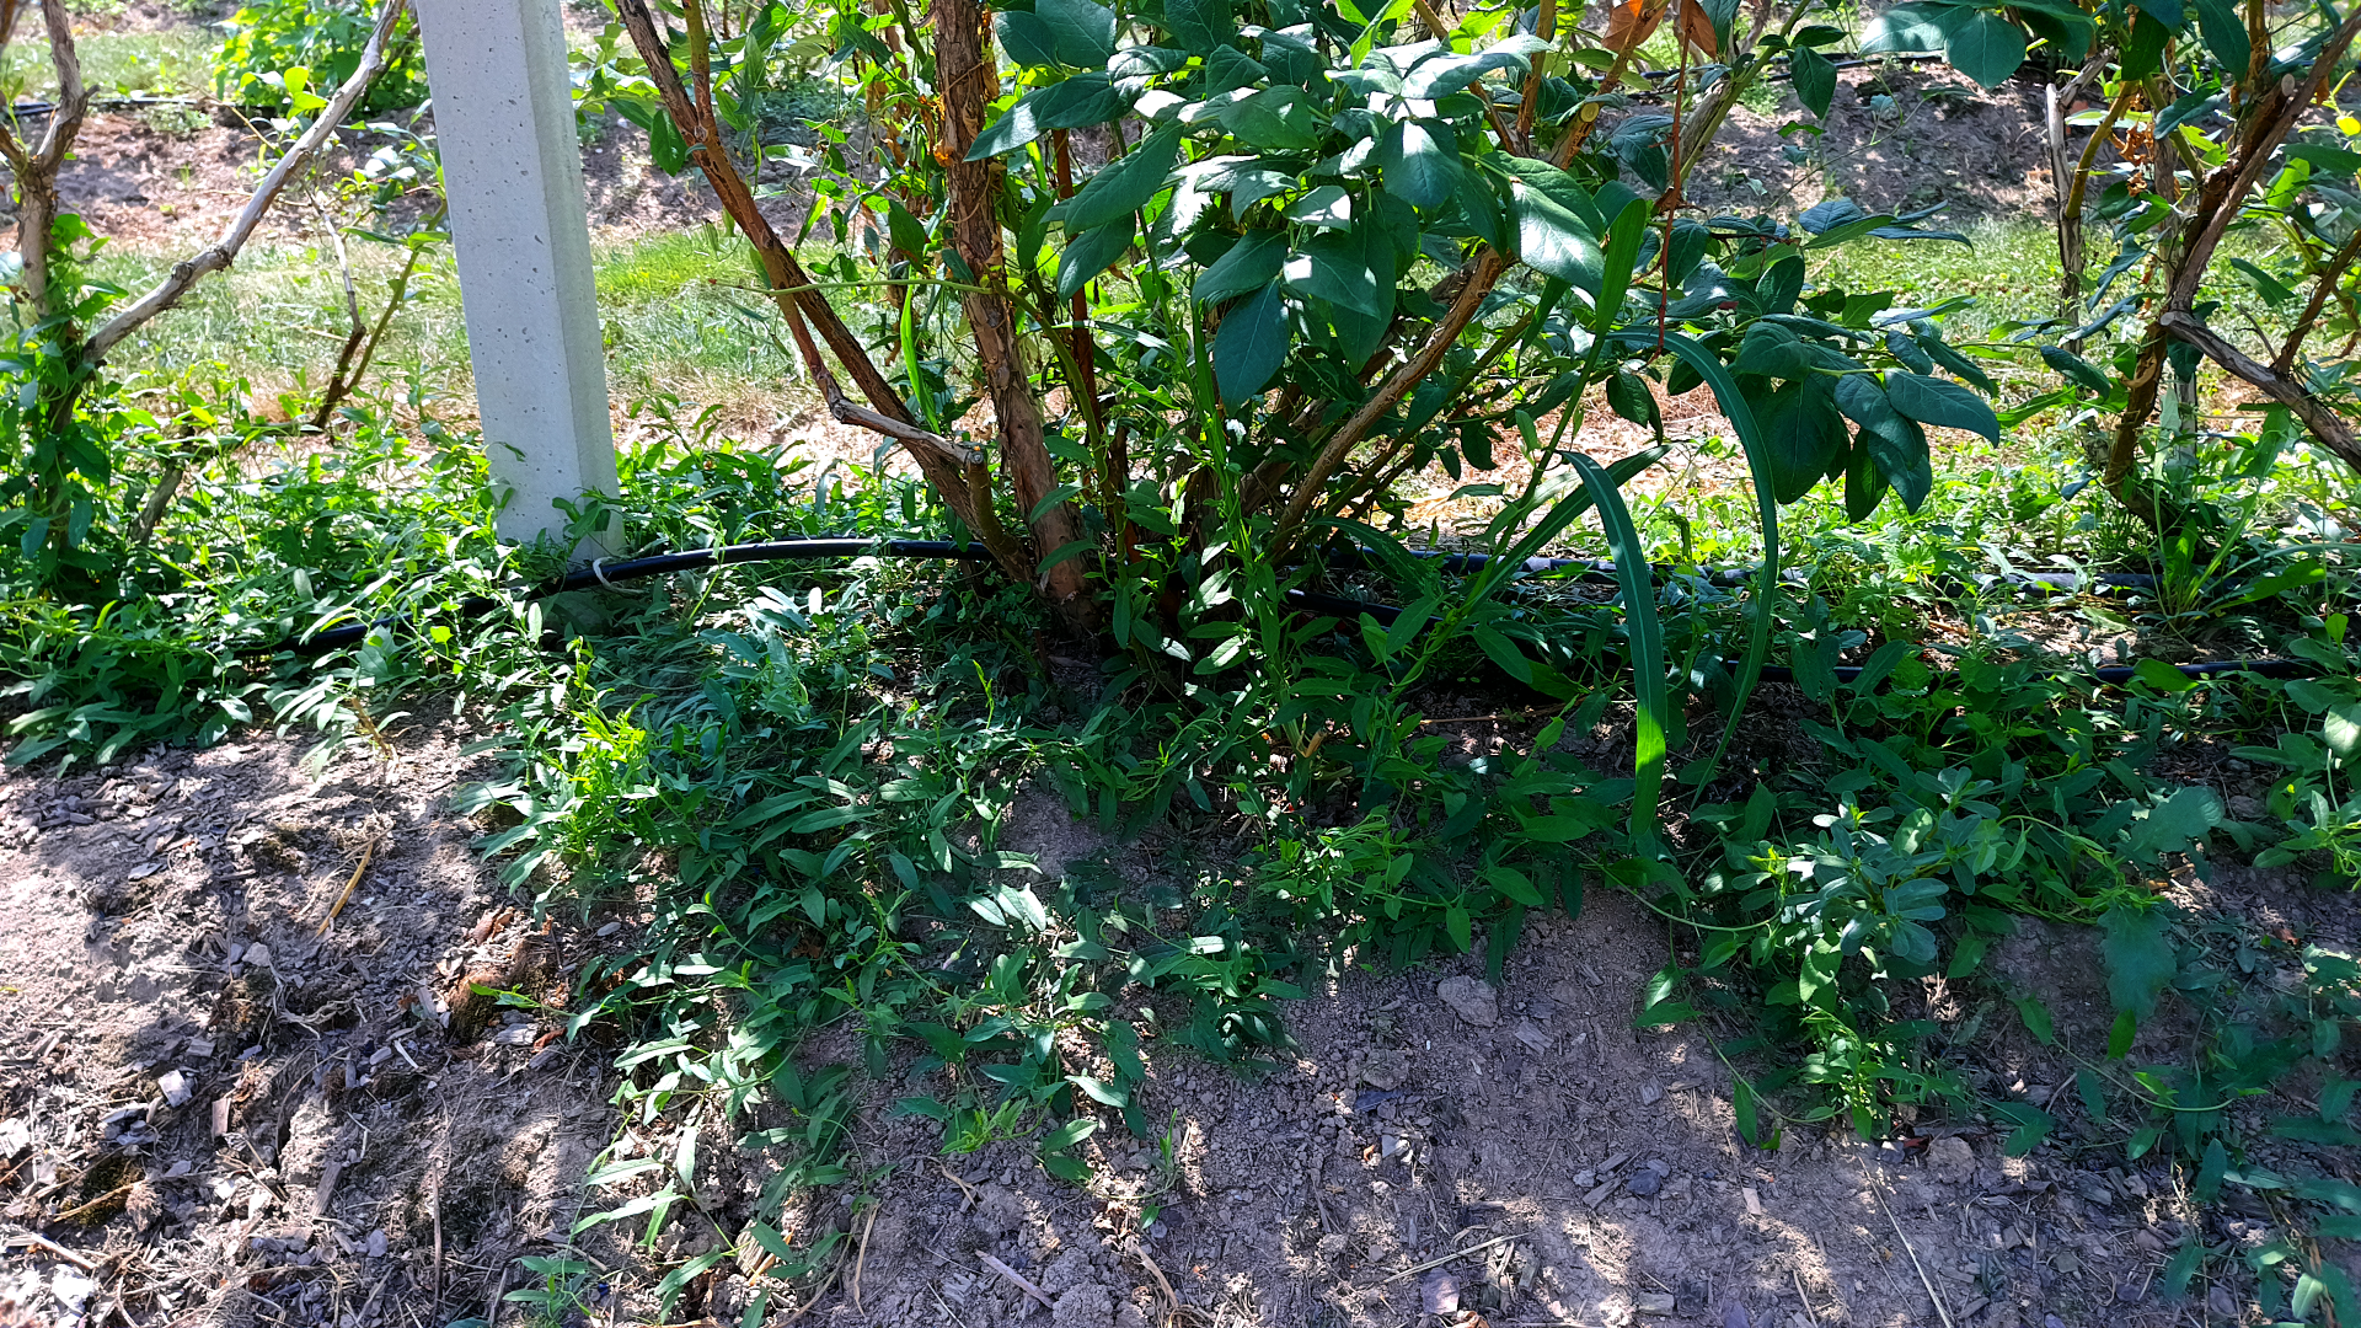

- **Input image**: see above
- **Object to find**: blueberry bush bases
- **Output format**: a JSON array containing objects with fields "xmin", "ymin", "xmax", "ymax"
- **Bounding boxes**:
[
  {"xmin": 823, "ymin": 341, "xmax": 1477, "ymax": 778},
  {"xmin": 2035, "ymin": 350, "xmax": 2361, "ymax": 813},
  {"xmin": 1, "ymin": 370, "xmax": 262, "ymax": 772}
]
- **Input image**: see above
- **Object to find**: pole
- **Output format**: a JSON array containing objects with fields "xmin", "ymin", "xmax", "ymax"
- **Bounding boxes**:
[{"xmin": 411, "ymin": 17, "xmax": 658, "ymax": 578}]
